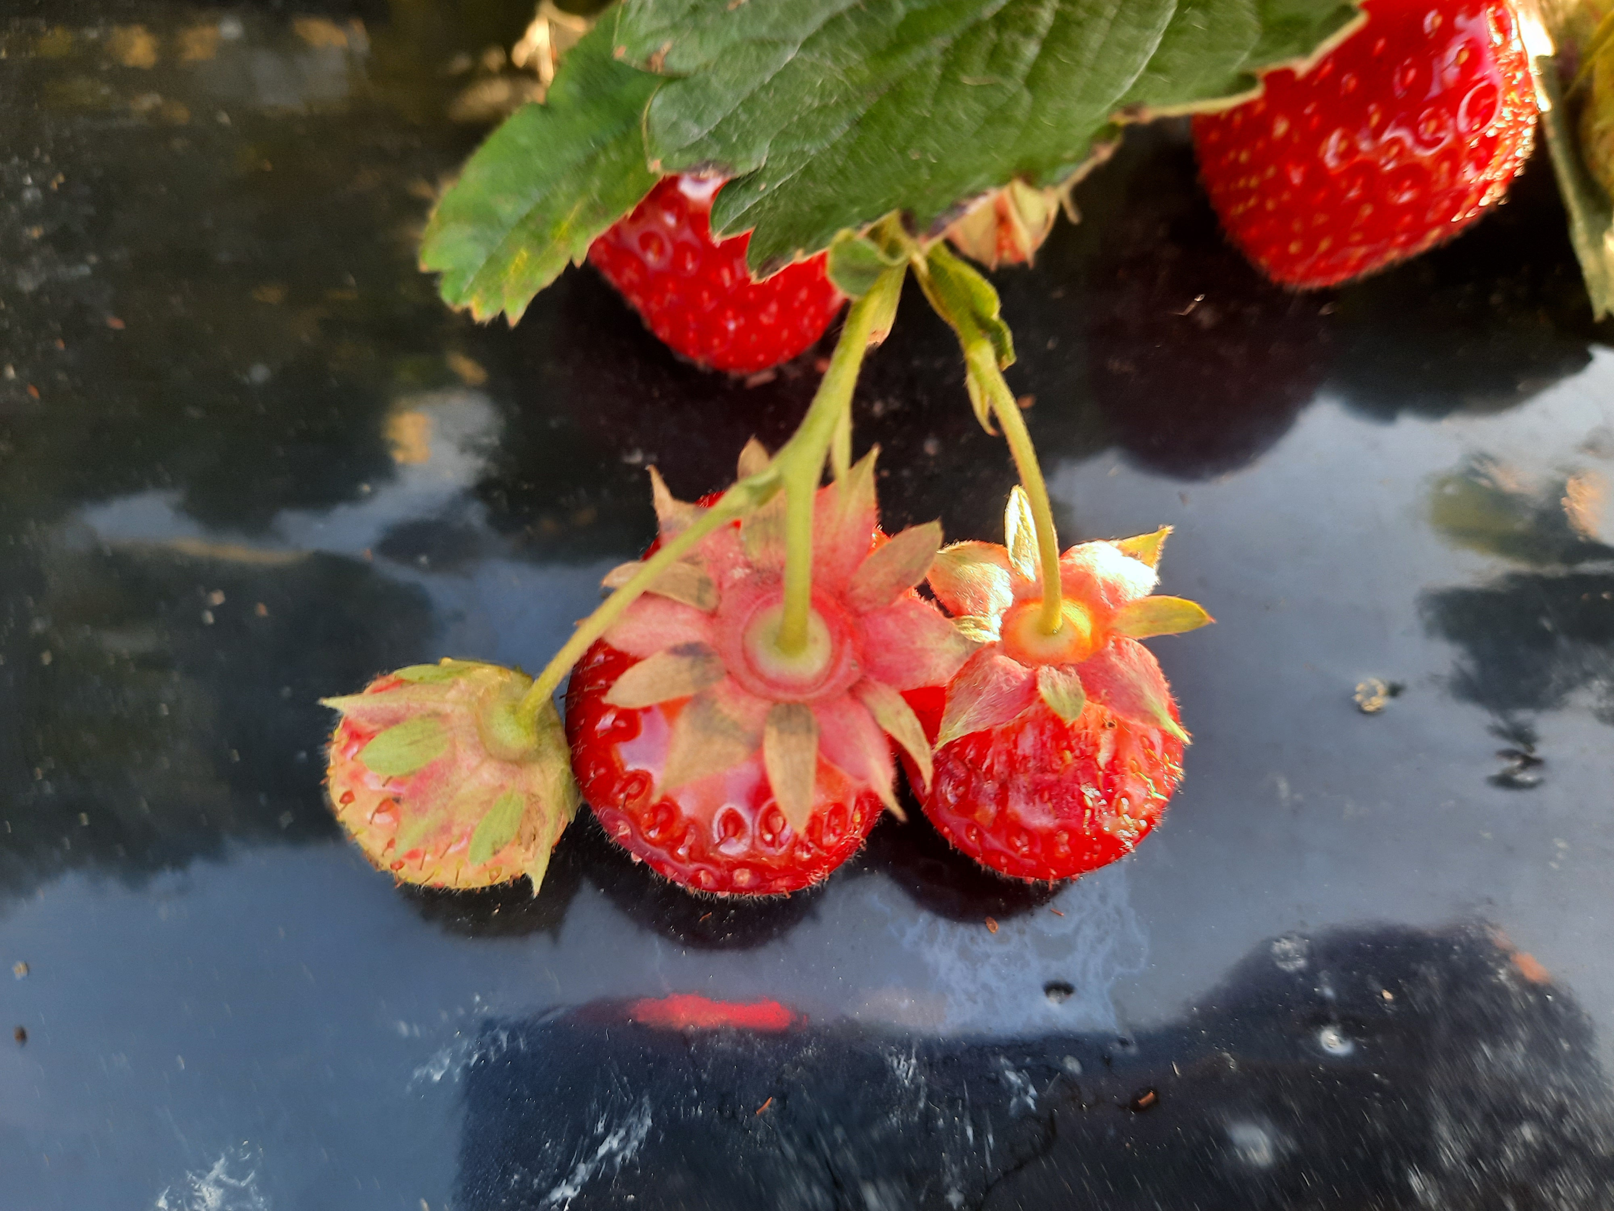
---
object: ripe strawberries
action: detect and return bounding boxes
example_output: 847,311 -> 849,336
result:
908,574 -> 1162,861
596,144 -> 865,363
1180,0 -> 1543,289
574,546 -> 896,887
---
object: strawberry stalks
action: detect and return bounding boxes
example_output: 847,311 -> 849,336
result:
756,423 -> 858,686
954,262 -> 1088,655
489,509 -> 687,745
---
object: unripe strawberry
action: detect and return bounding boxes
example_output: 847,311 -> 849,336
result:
336,683 -> 565,882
